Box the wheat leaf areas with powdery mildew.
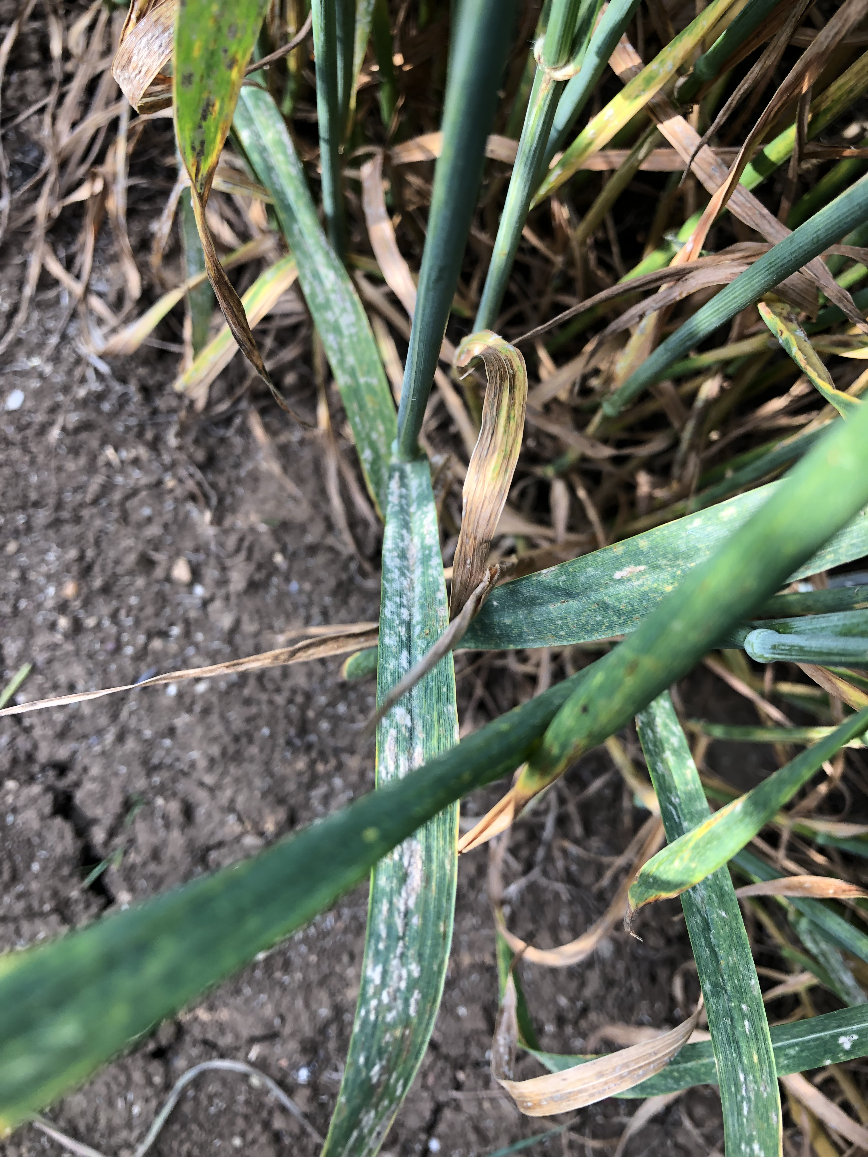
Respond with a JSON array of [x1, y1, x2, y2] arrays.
[[376, 463, 478, 774], [235, 88, 416, 484], [520, 487, 764, 616], [627, 705, 745, 838], [780, 906, 866, 1010], [681, 884, 799, 1157], [327, 833, 477, 1157], [783, 1007, 868, 1091]]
